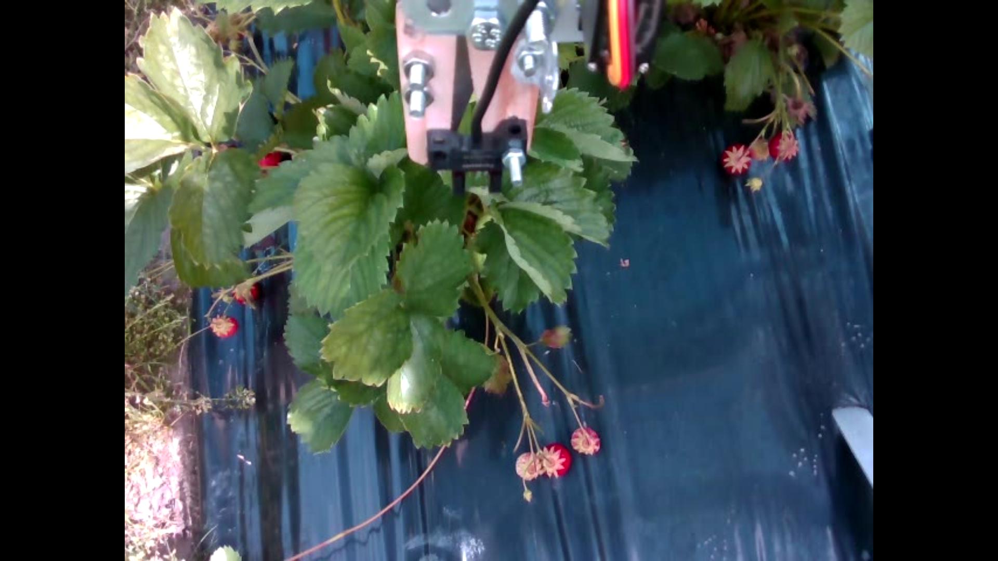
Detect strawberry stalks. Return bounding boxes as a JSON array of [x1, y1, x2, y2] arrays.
[[570, 413, 592, 439], [733, 131, 751, 172], [532, 430, 551, 463], [199, 301, 215, 325], [522, 439, 539, 466], [239, 264, 278, 290], [777, 115, 794, 143]]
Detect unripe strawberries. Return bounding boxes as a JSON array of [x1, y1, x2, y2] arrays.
[[571, 425, 603, 455], [514, 455, 542, 480]]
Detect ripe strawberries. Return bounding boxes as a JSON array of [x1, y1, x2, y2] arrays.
[[770, 135, 800, 163], [228, 274, 263, 308], [541, 441, 575, 481], [720, 143, 756, 176], [249, 140, 287, 168], [207, 312, 243, 338]]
